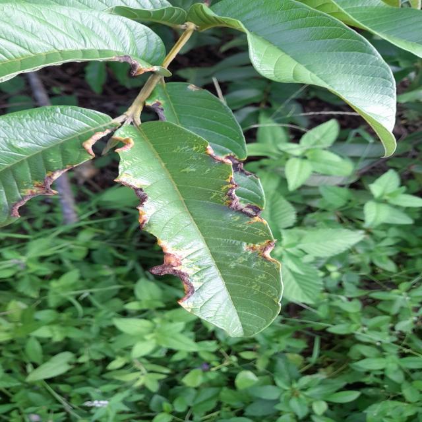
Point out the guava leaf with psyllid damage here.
[111,122,299,346]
